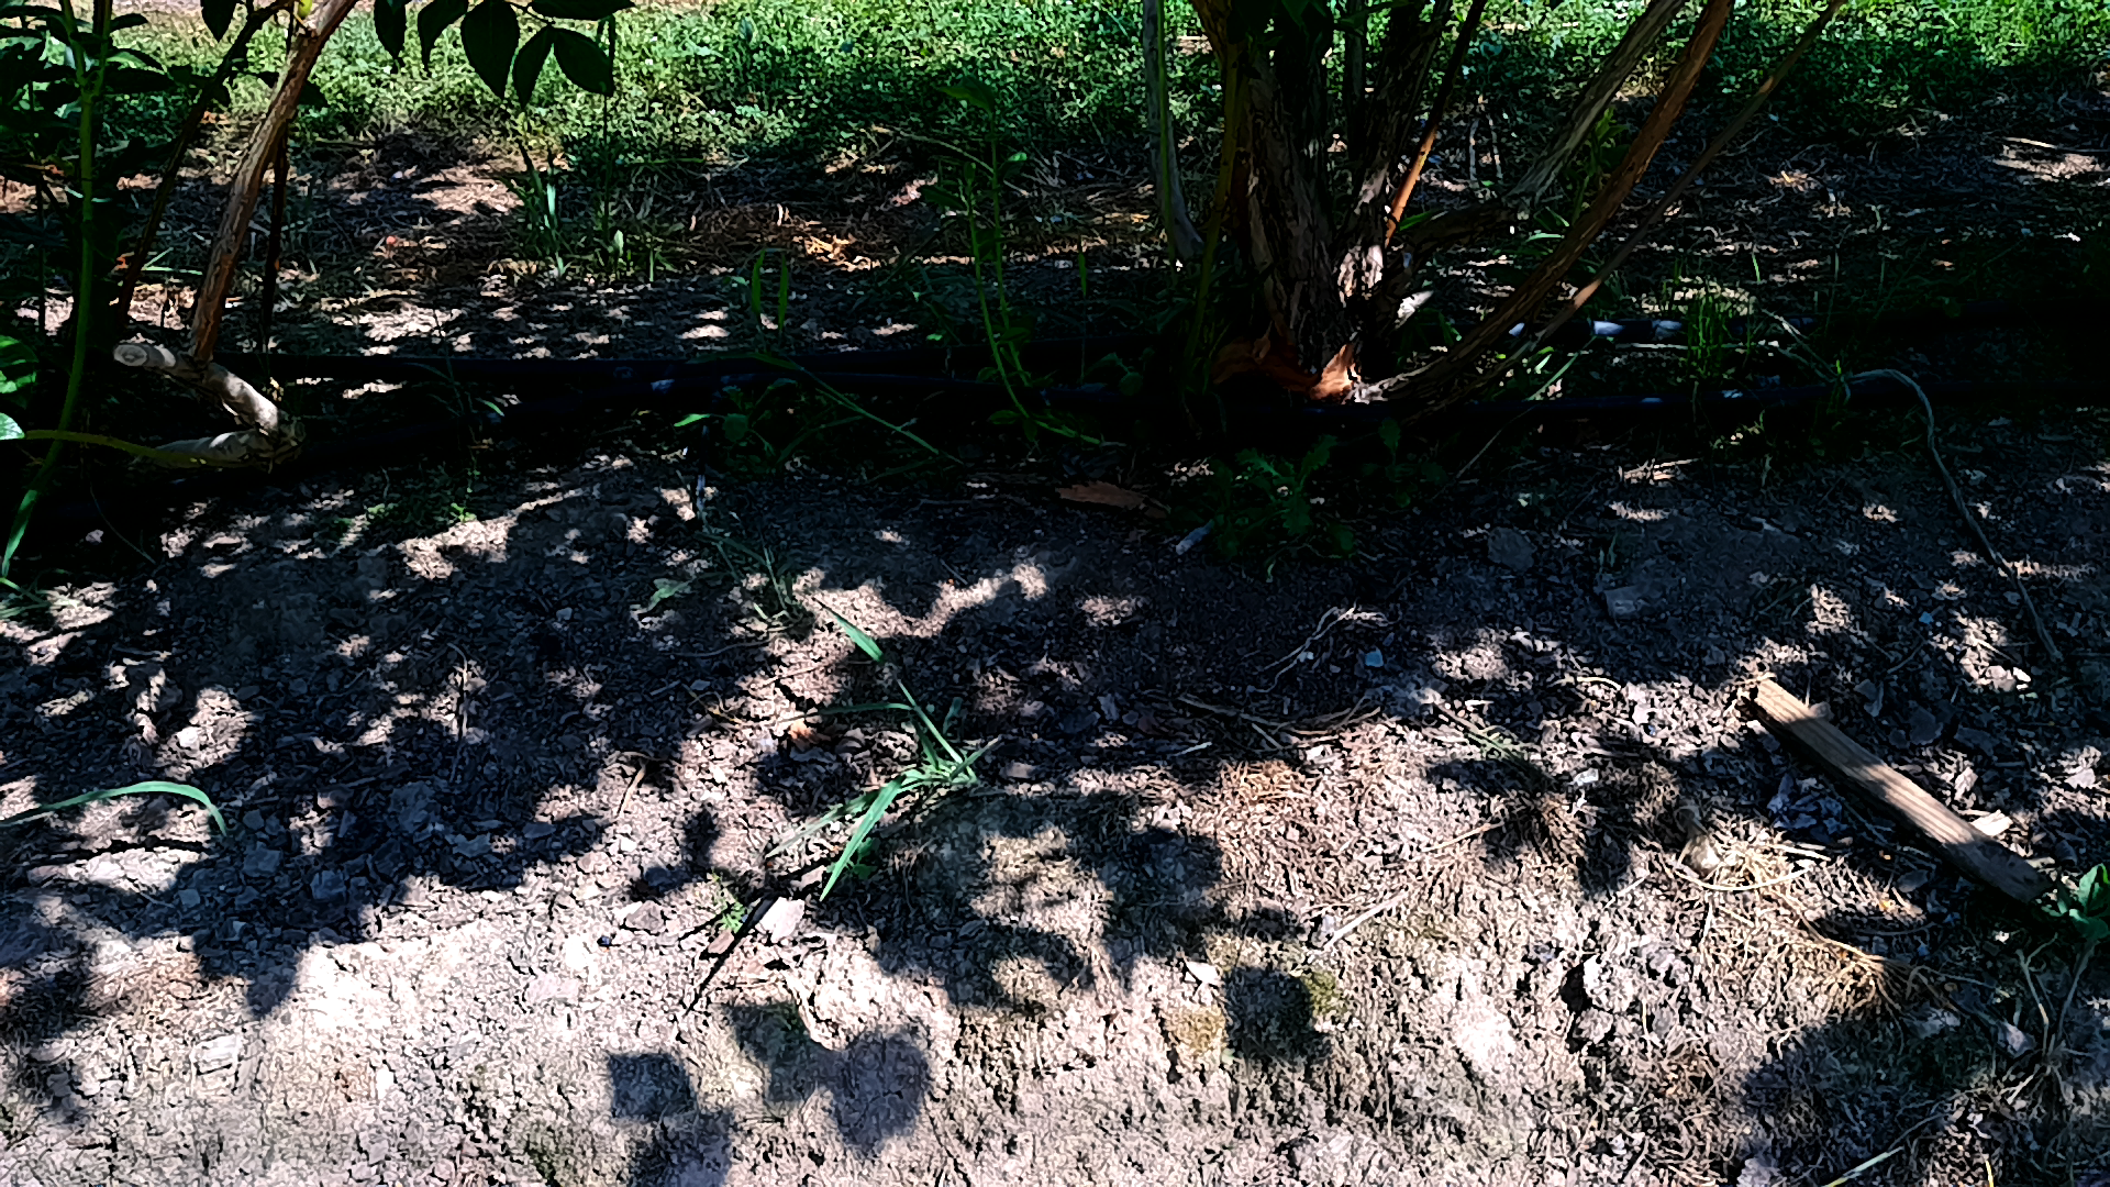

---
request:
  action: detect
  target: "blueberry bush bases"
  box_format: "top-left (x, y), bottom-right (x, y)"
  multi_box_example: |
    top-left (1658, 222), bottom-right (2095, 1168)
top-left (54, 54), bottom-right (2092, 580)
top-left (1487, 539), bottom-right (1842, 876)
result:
top-left (1107, 83), bottom-right (1673, 520)
top-left (3, 86), bottom-right (314, 541)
